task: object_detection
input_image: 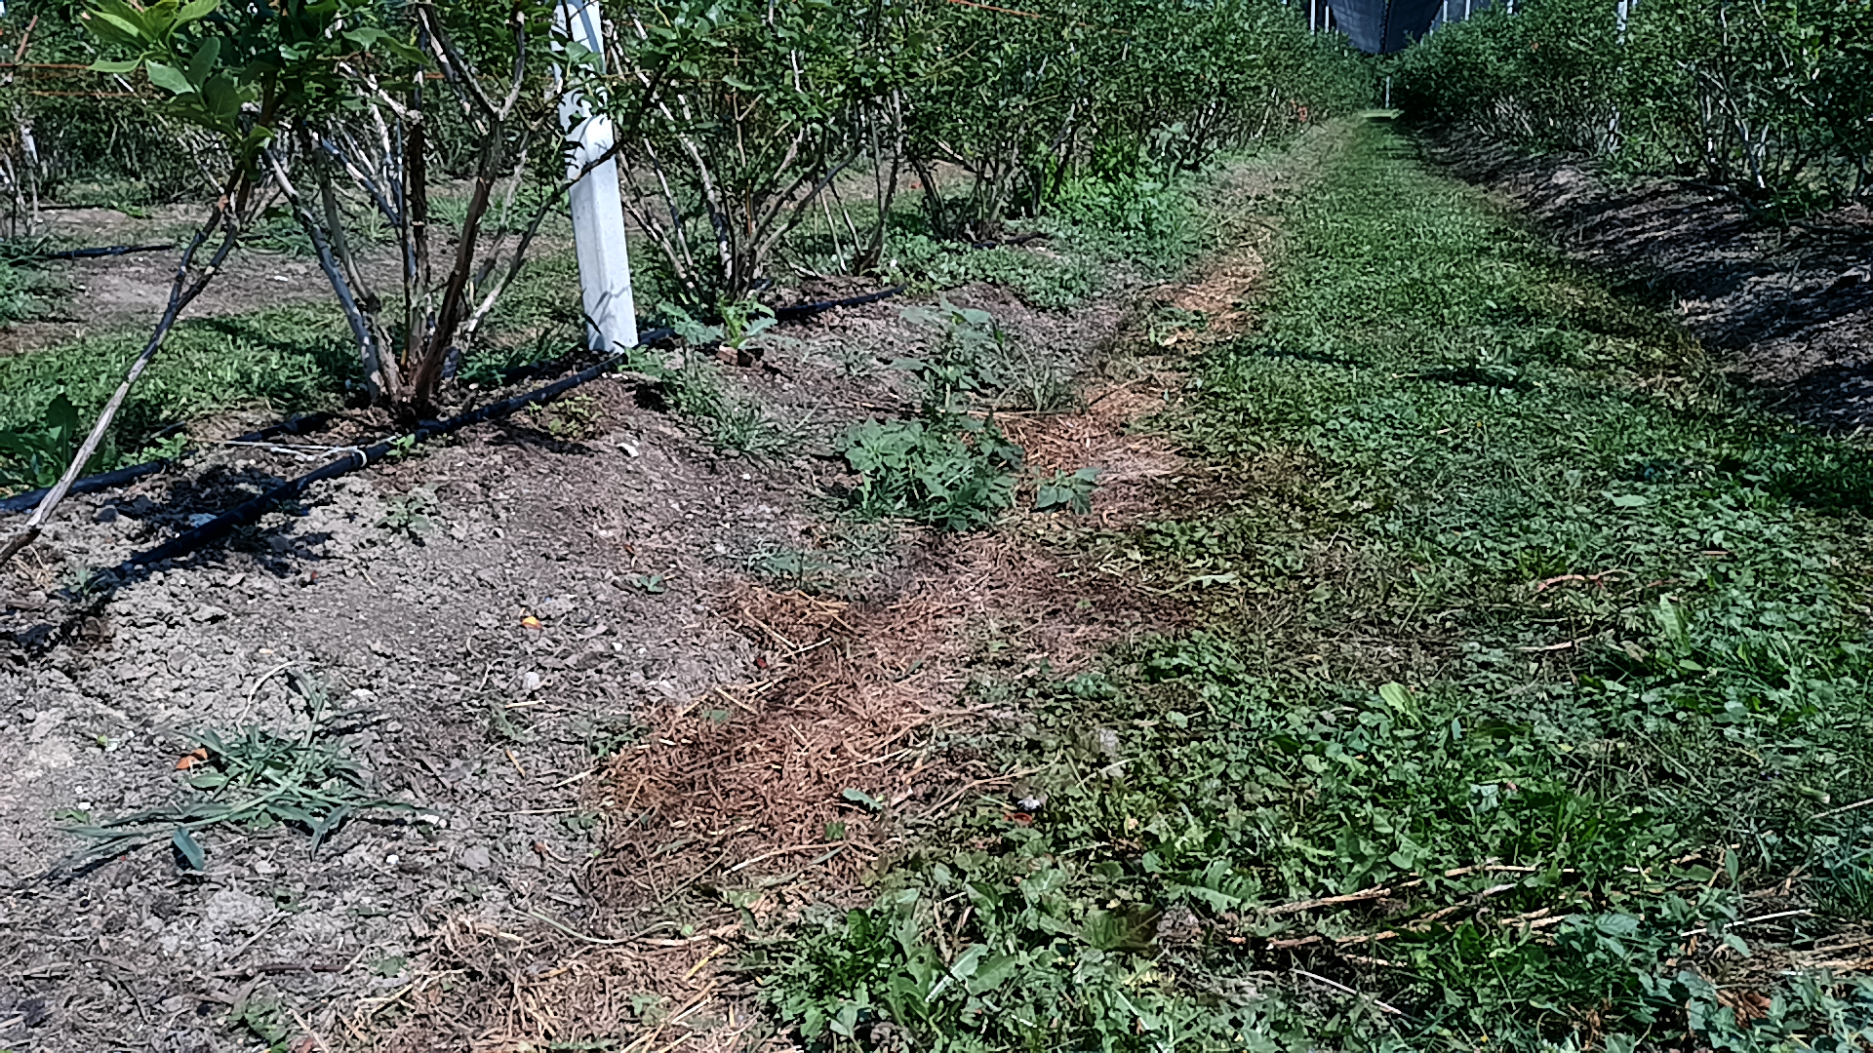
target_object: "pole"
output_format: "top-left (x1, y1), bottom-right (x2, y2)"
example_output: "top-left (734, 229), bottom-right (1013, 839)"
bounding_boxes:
top-left (550, 0), bottom-right (643, 374)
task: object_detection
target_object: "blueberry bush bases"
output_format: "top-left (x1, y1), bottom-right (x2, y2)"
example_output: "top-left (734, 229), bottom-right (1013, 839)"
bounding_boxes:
top-left (909, 177), bottom-right (1014, 260)
top-left (215, 189), bottom-right (279, 236)
top-left (653, 230), bottom-right (797, 353)
top-left (0, 195), bottom-right (57, 278)
top-left (1679, 122), bottom-right (1847, 235)
top-left (302, 280), bottom-right (527, 463)
top-left (792, 206), bottom-right (911, 302)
